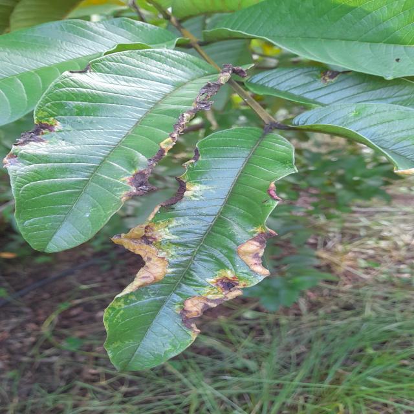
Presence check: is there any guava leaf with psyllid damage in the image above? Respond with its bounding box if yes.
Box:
[87,129,308,374]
